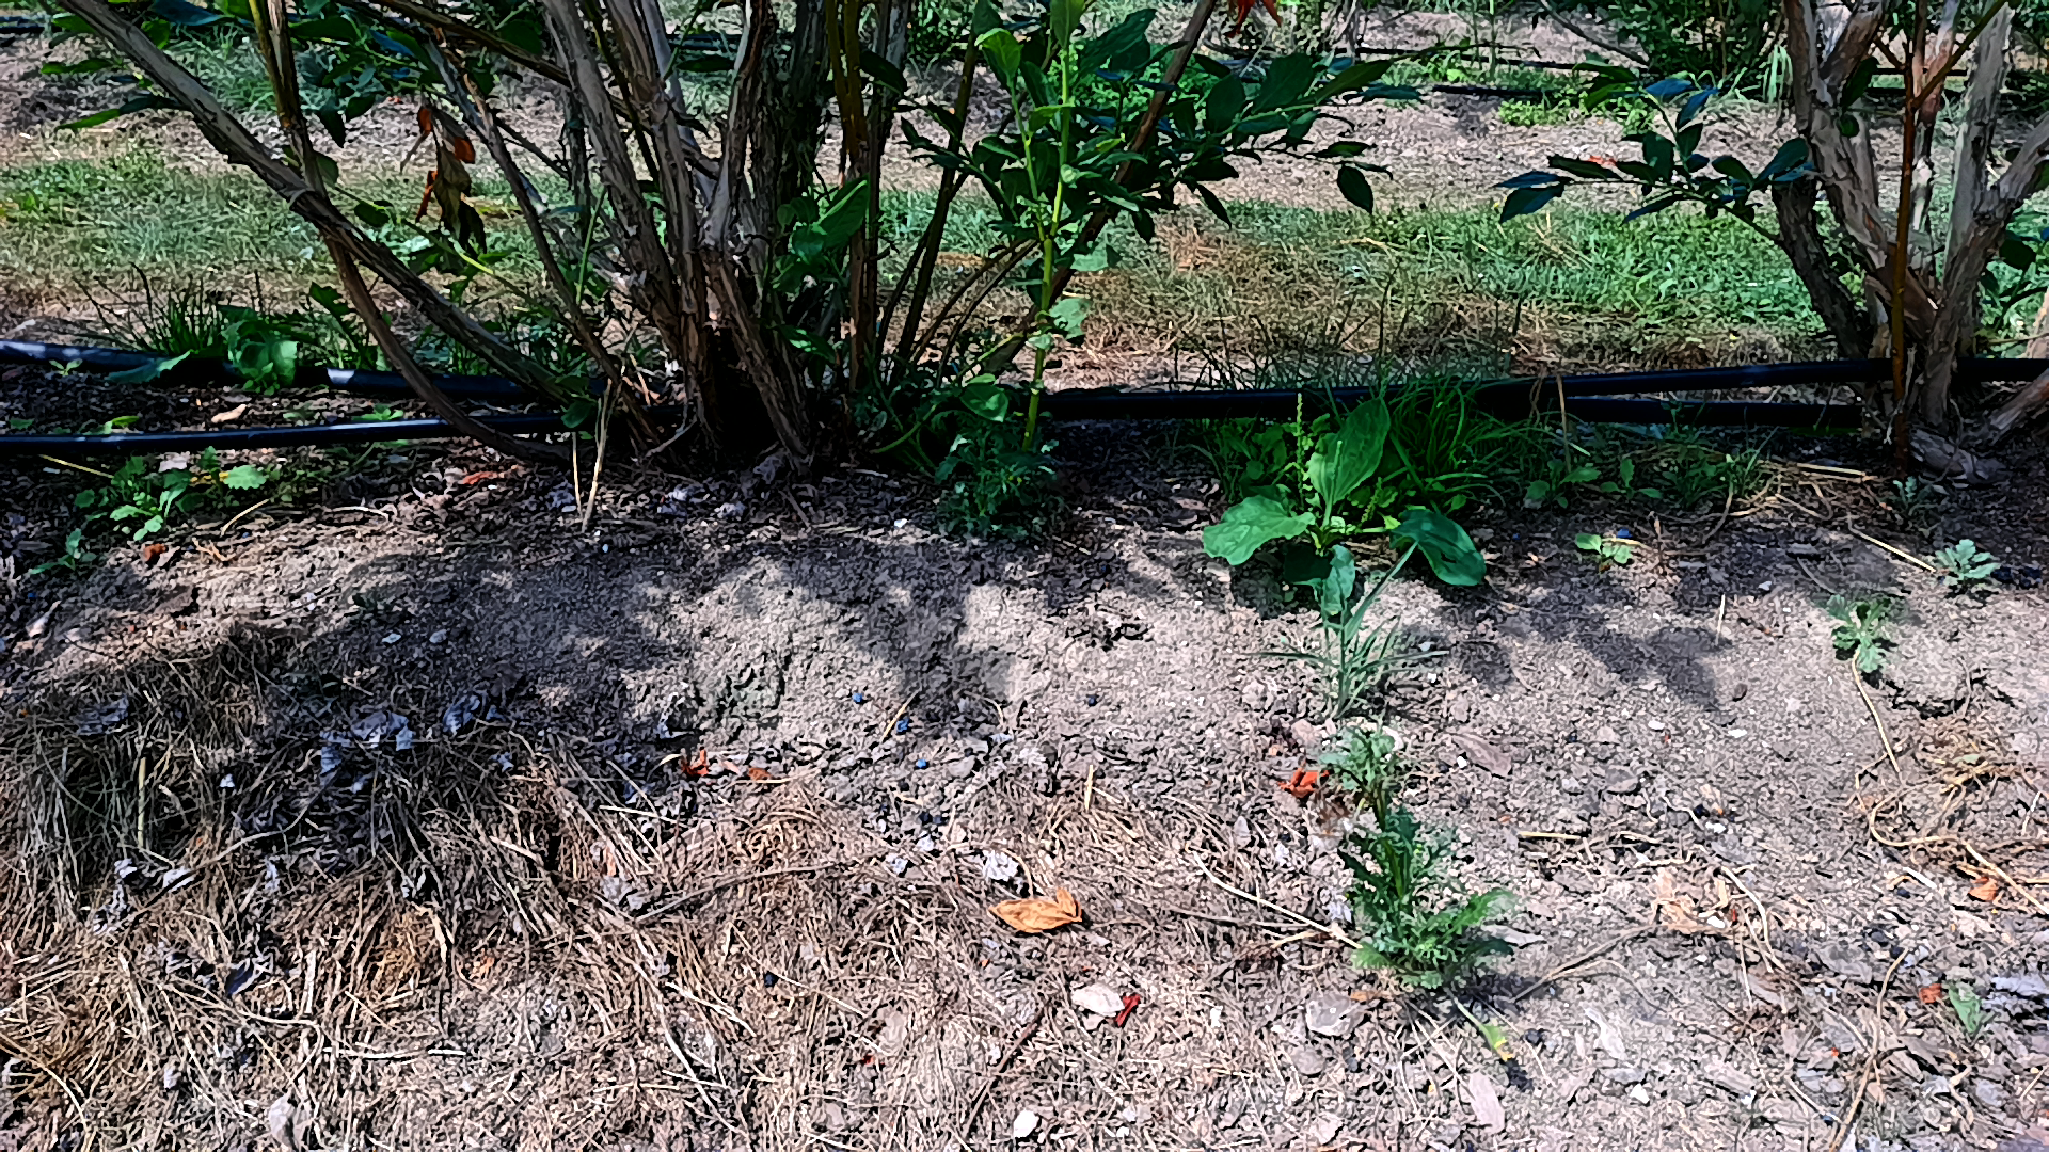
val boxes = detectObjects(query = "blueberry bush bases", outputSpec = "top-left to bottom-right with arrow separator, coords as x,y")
384,154 -> 1095,569
1744,162 -> 2049,526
